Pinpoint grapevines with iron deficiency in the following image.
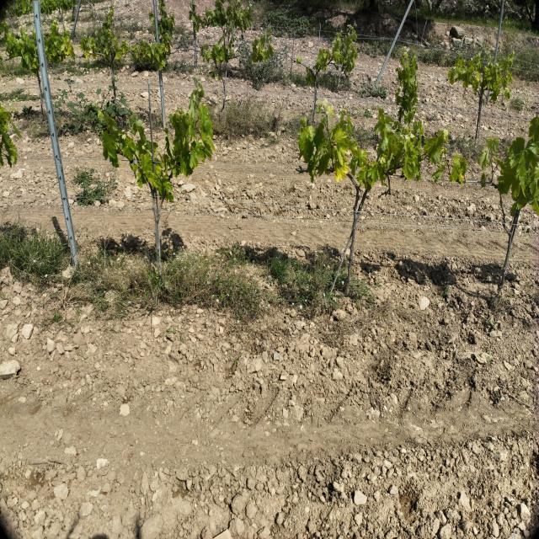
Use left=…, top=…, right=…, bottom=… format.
left=92, top=71, right=221, bottom=281
left=296, top=98, right=451, bottom=299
